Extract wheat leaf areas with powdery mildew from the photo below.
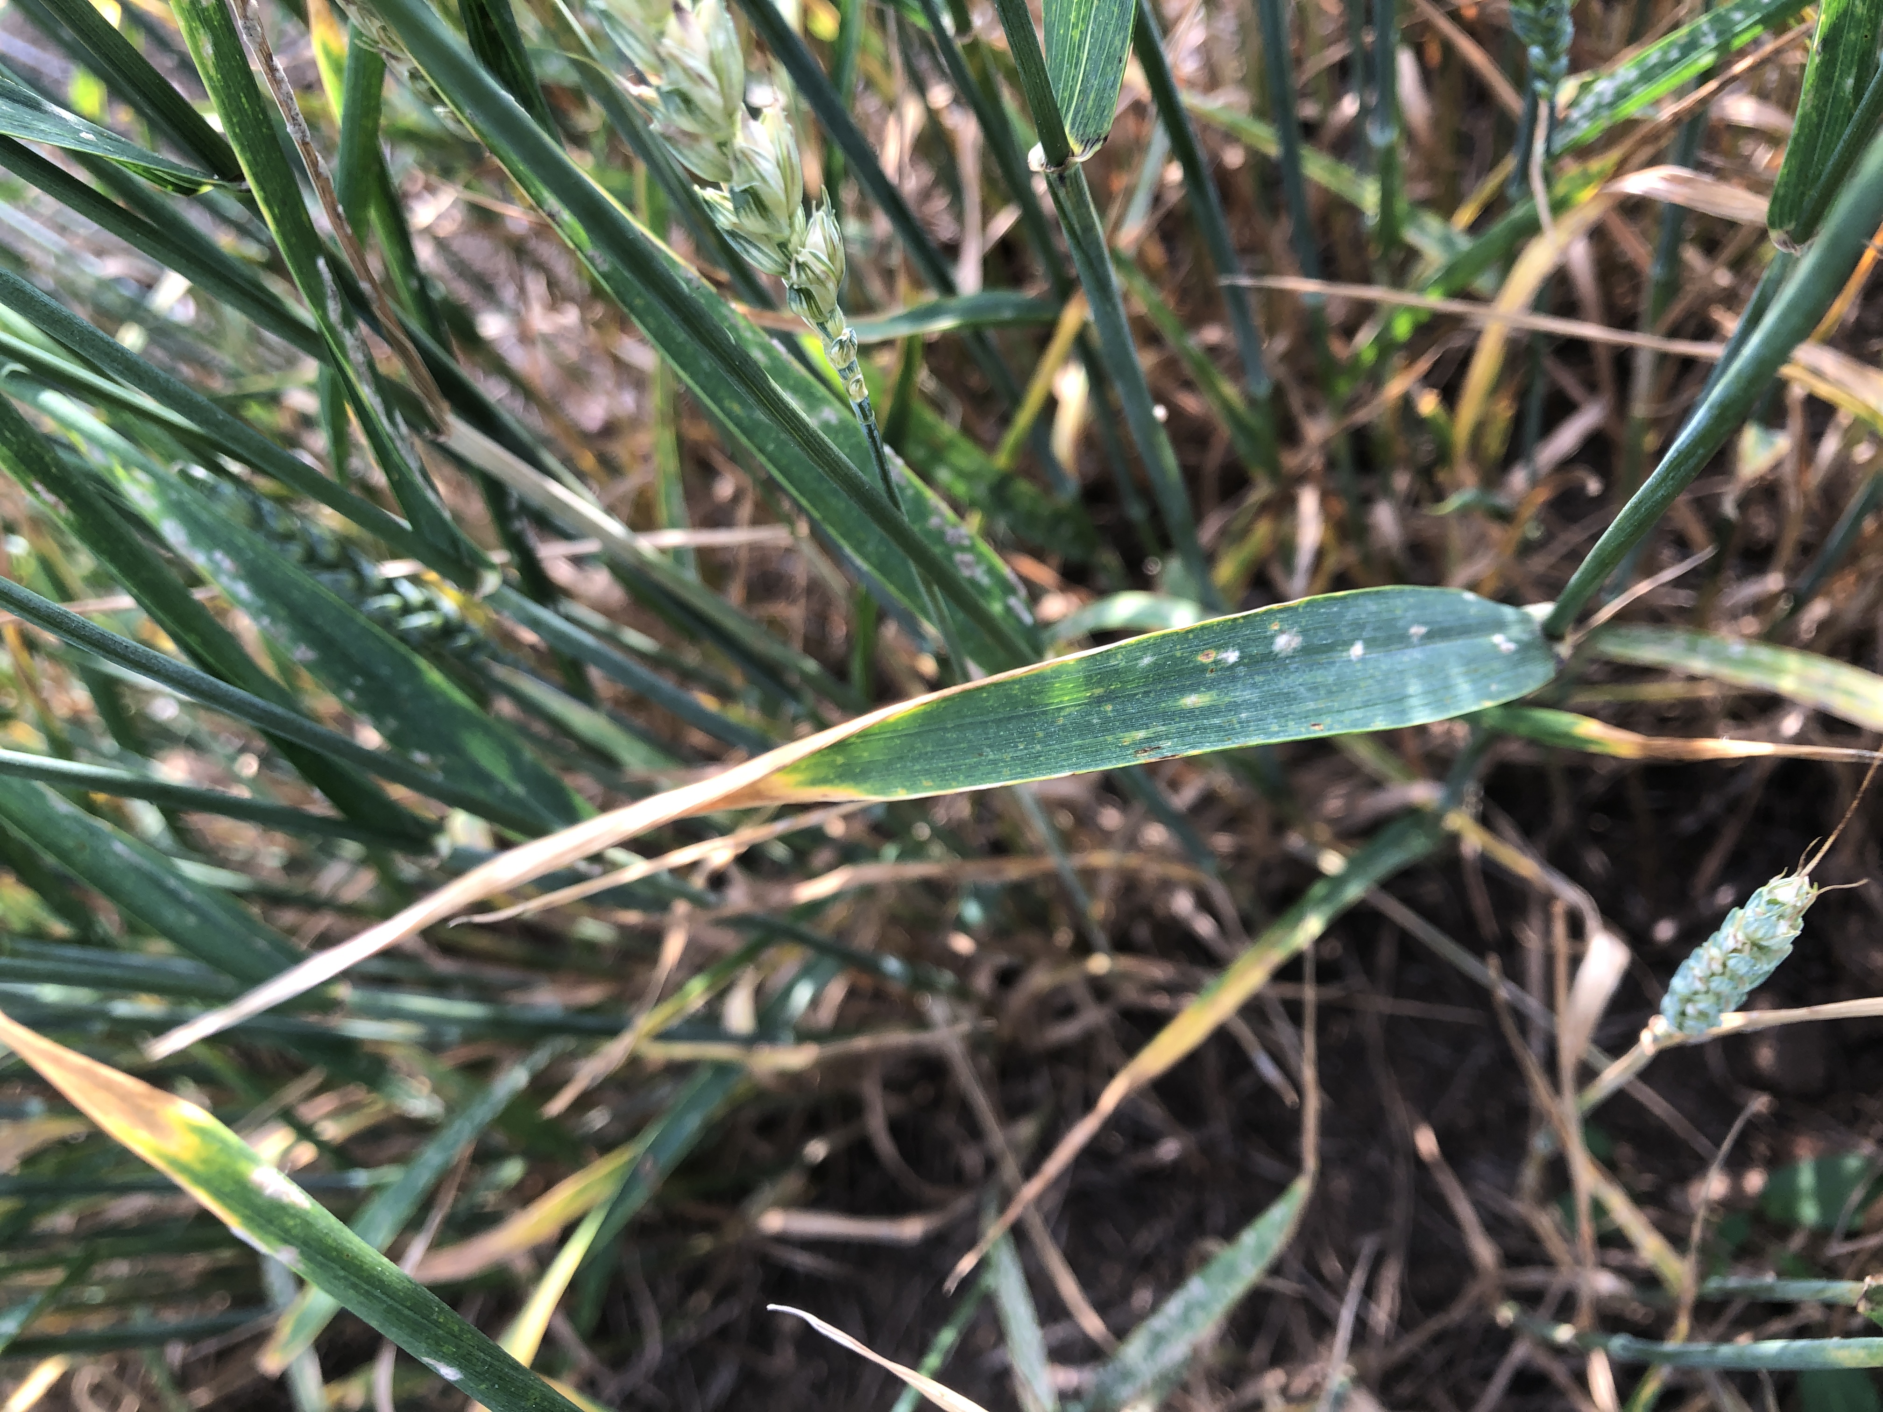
[1060,582,1537,763]
[715,286,863,468]
[878,447,1036,634]
[156,478,478,779]
[1547,0,1784,146]
[1083,1197,1330,1407]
